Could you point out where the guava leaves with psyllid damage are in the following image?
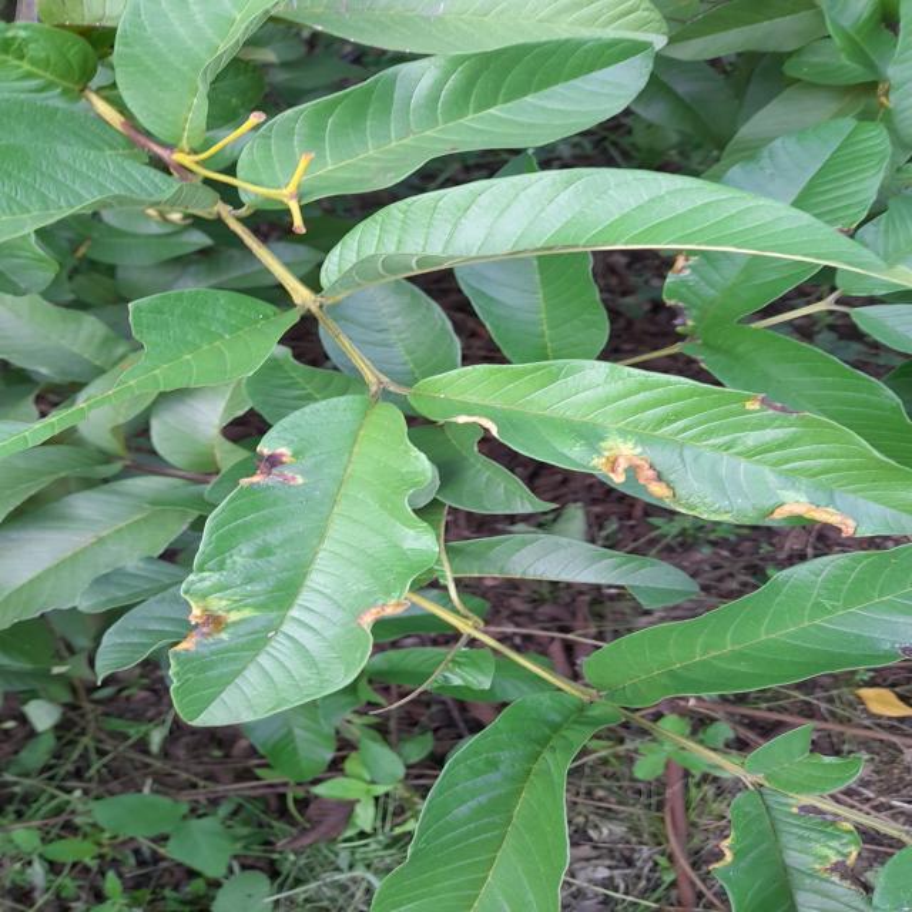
[114,385,457,749]
[369,341,907,564]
